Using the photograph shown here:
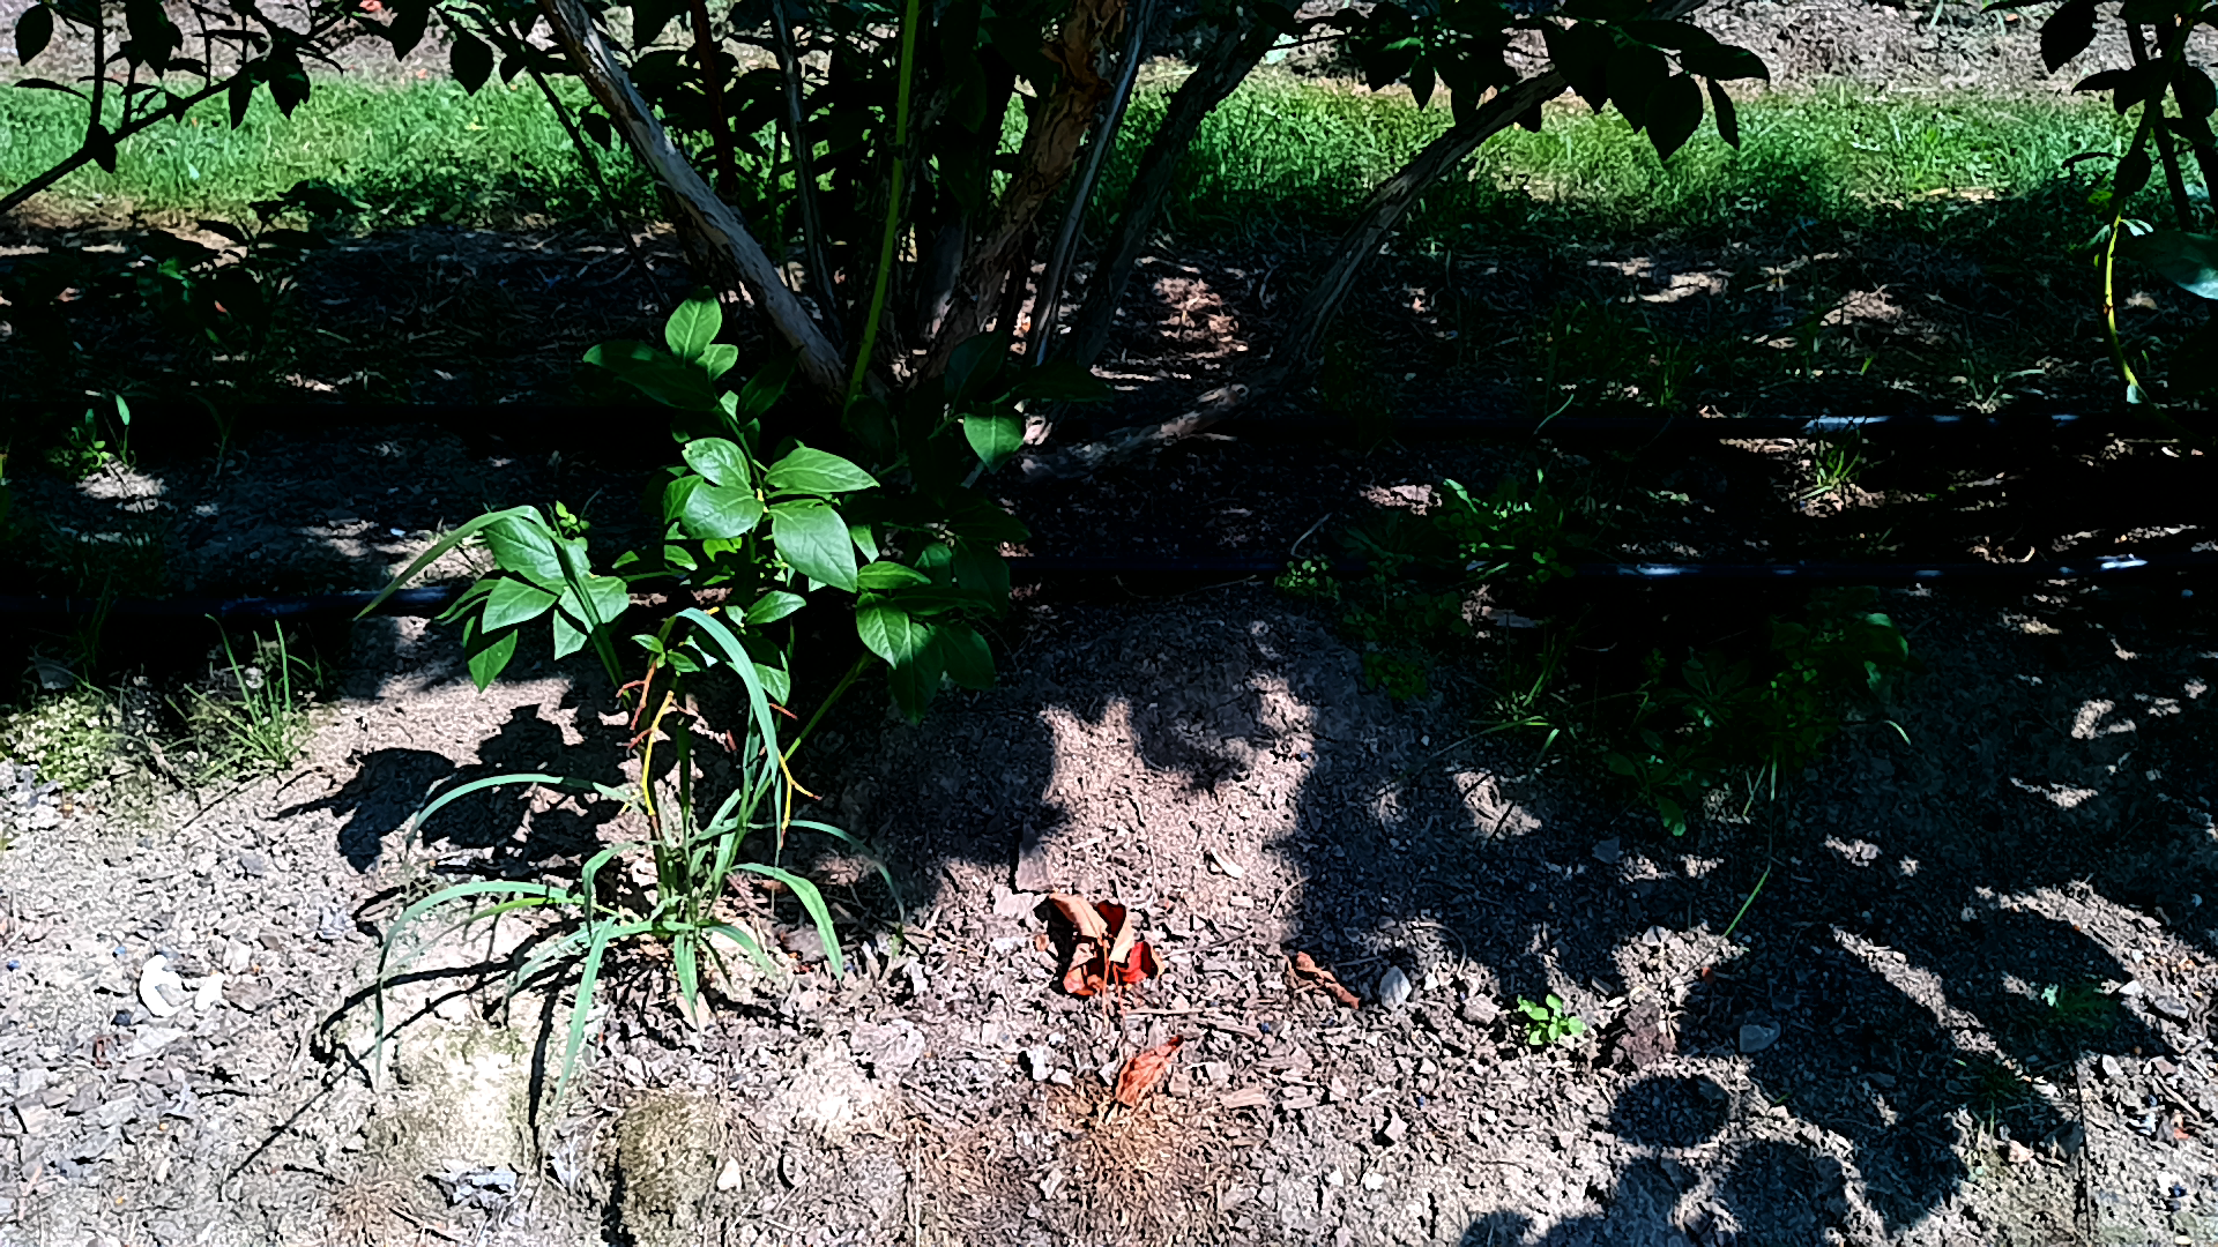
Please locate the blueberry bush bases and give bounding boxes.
[2074,27,2215,591]
[585,138,1277,665]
